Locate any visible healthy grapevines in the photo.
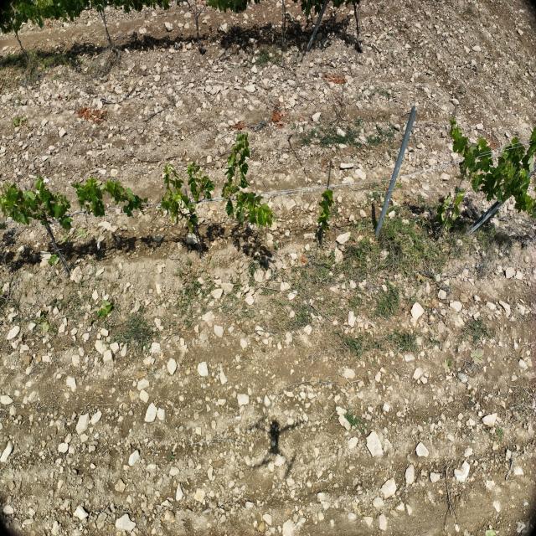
[437,114,536,253]
[0,170,106,293]
[310,178,340,255]
[105,129,277,264]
